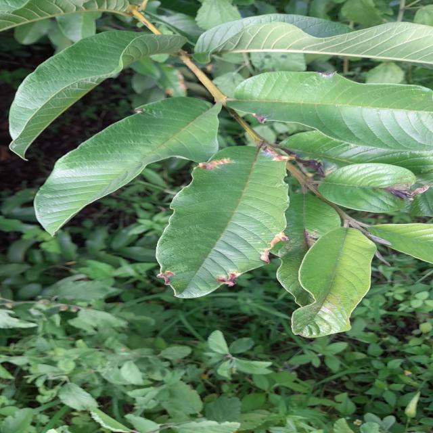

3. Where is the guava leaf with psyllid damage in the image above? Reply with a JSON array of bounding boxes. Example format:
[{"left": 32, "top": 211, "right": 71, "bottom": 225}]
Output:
[{"left": 152, "top": 145, "right": 302, "bottom": 316}]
